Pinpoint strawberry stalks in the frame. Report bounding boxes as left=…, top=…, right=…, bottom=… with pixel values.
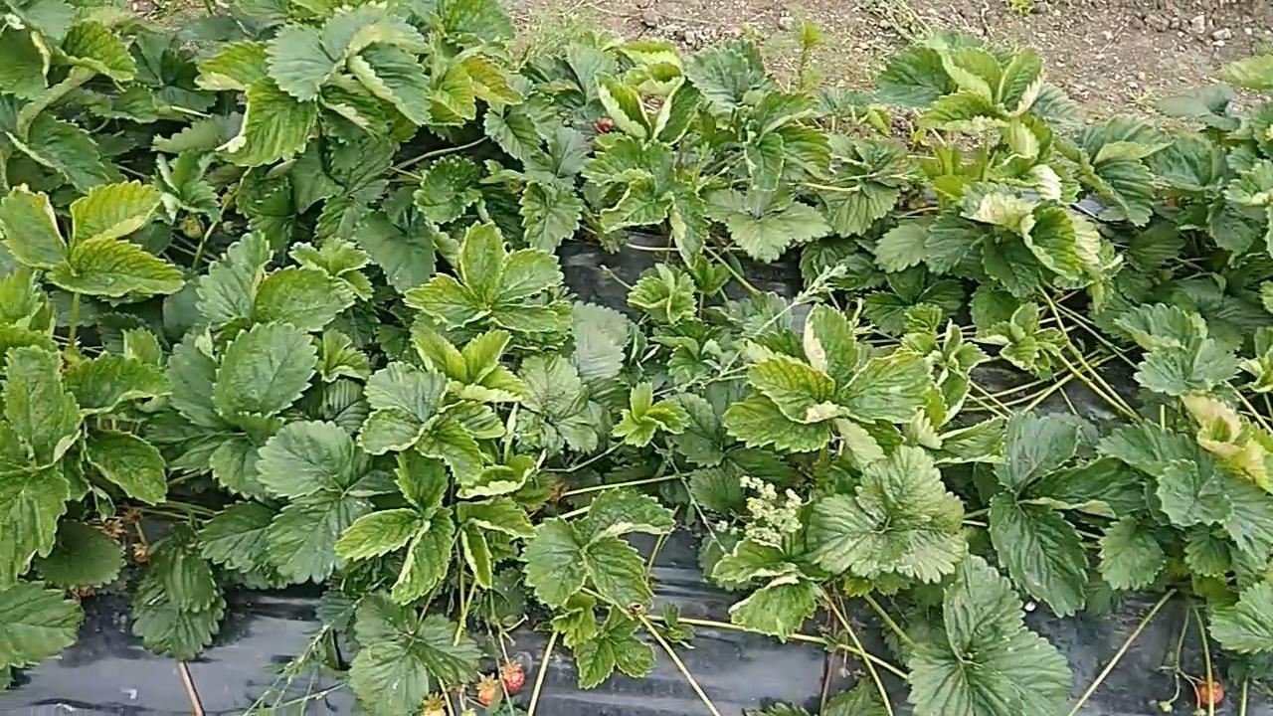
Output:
left=1175, top=660, right=1204, bottom=689
left=497, top=628, right=516, bottom=675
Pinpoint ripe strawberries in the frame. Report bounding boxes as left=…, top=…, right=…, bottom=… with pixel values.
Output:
left=1197, top=679, right=1225, bottom=705
left=499, top=661, right=527, bottom=695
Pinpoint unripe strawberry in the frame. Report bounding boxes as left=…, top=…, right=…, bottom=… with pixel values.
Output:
left=180, top=213, right=201, bottom=239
